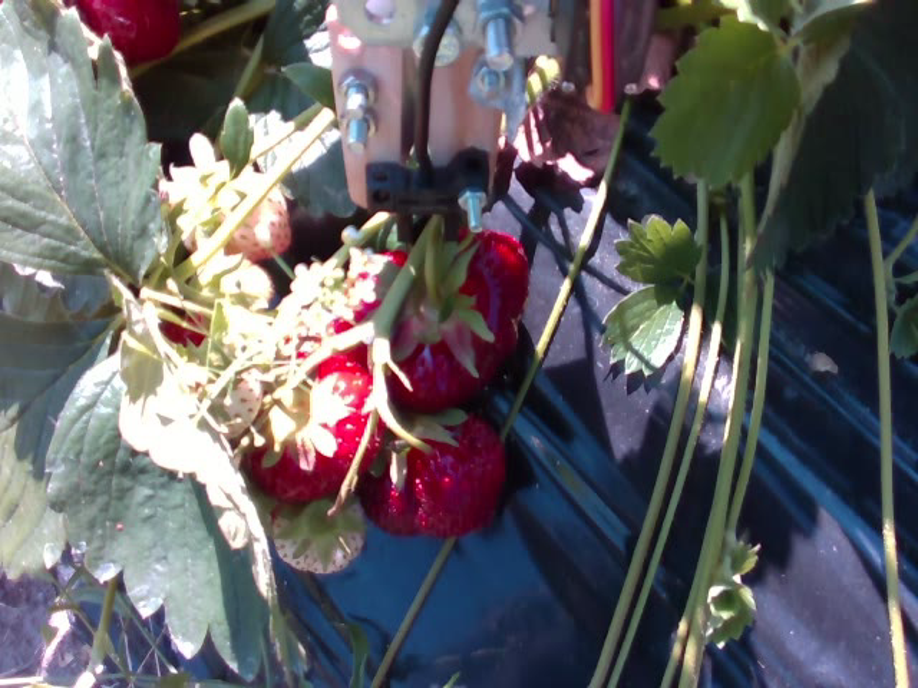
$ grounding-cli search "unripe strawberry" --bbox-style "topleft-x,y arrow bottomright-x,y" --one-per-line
201,167 -> 293,258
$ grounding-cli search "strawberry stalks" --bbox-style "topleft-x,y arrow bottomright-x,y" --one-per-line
422,212 -> 465,319
378,397 -> 443,472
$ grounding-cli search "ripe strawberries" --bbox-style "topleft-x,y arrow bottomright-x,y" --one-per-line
67,0 -> 182,54
250,357 -> 389,498
378,236 -> 528,391
379,412 -> 516,533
